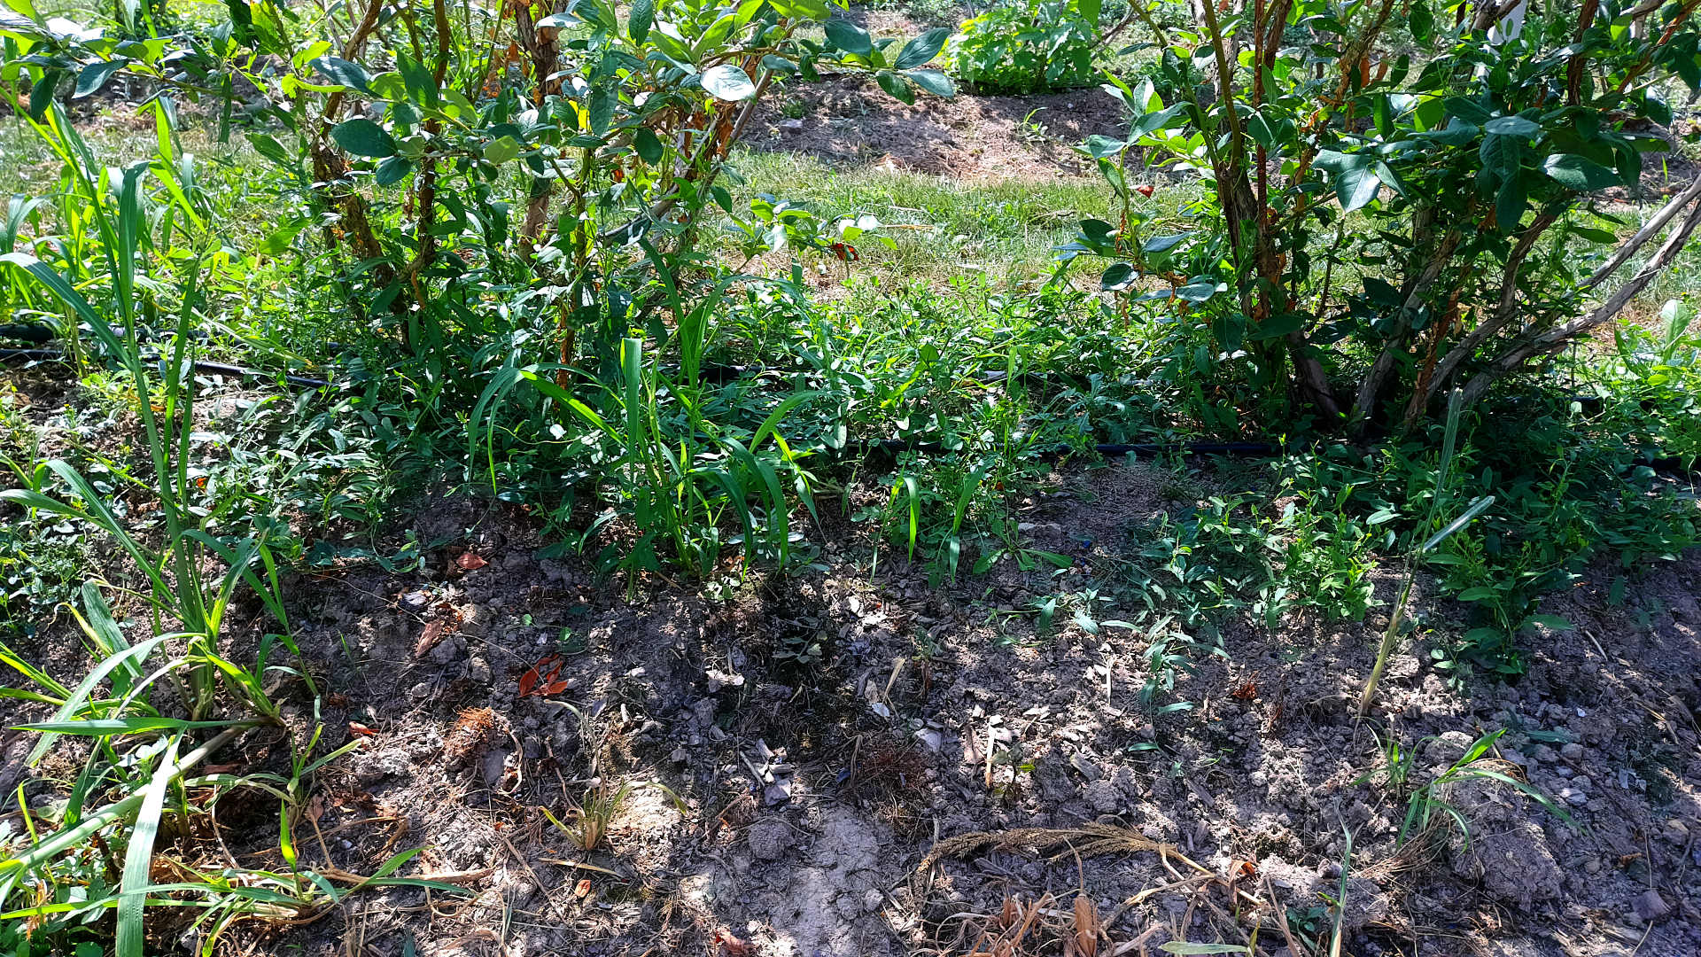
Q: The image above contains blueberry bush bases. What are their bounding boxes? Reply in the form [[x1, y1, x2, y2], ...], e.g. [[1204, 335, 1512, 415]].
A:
[[1177, 230, 1618, 531], [318, 204, 709, 514], [928, 11, 1129, 105]]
